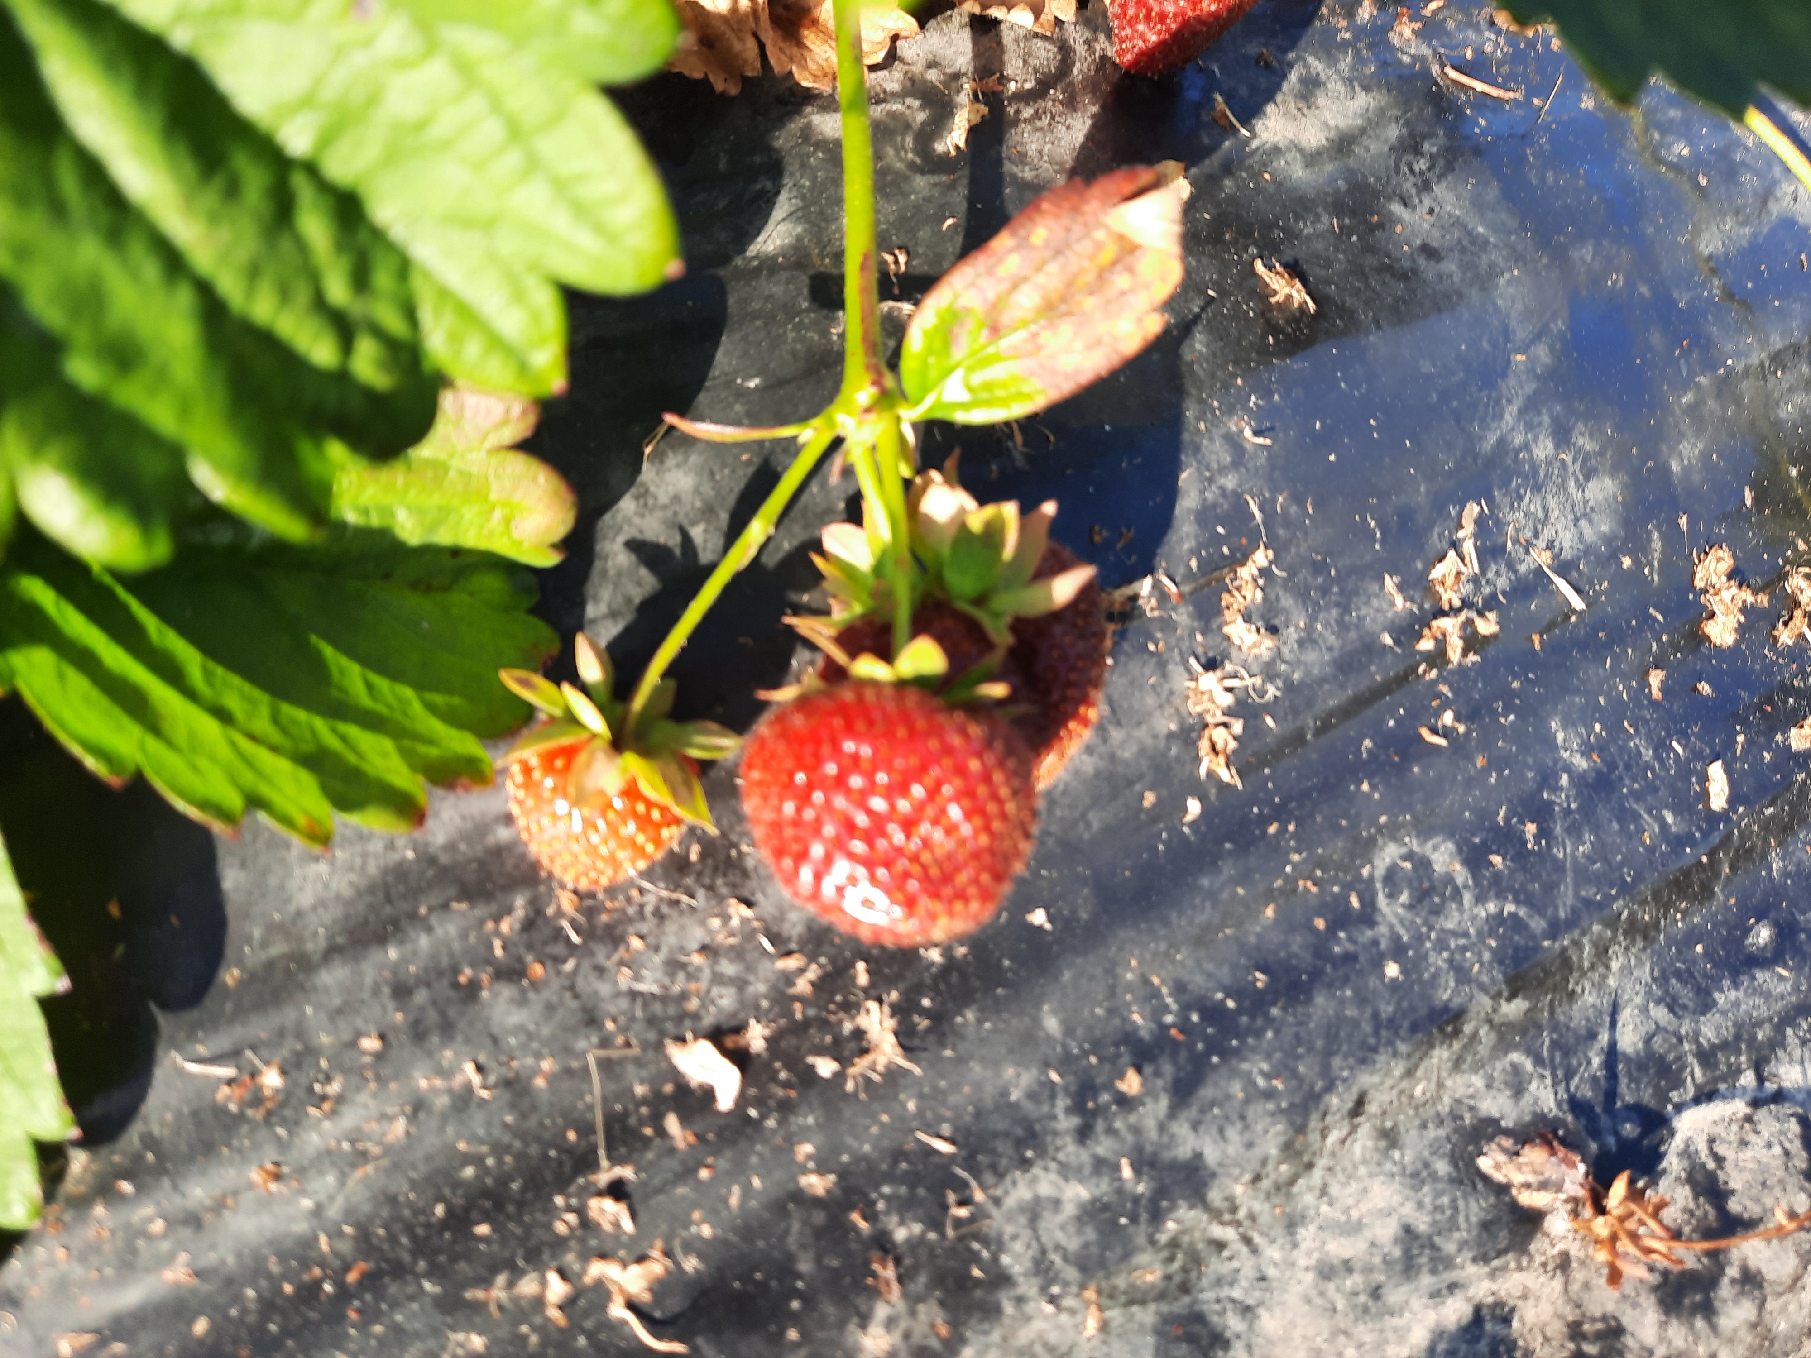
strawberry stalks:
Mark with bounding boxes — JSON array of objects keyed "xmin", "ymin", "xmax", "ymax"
[
  {"xmin": 598, "ymin": 474, "xmax": 770, "ymax": 772},
  {"xmin": 870, "ymin": 424, "xmax": 946, "ymax": 741}
]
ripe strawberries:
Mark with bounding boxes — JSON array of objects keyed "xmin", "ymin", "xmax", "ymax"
[
  {"xmin": 512, "ymin": 721, "xmax": 665, "ymax": 879},
  {"xmin": 737, "ymin": 672, "xmax": 1047, "ymax": 944}
]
